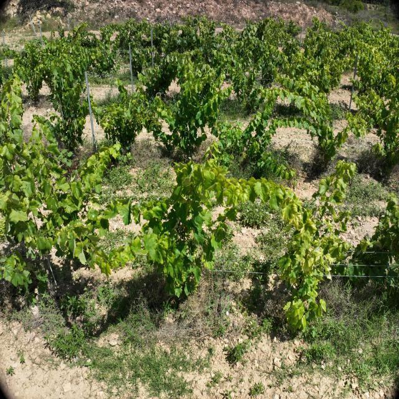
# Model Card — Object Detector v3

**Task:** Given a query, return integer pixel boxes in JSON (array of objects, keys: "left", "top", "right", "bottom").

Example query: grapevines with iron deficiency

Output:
[
  {"left": 132, "top": 142, "right": 239, "bottom": 304},
  {"left": 0, "top": 129, "right": 136, "bottom": 318},
  {"left": 228, "top": 160, "right": 361, "bottom": 330}
]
